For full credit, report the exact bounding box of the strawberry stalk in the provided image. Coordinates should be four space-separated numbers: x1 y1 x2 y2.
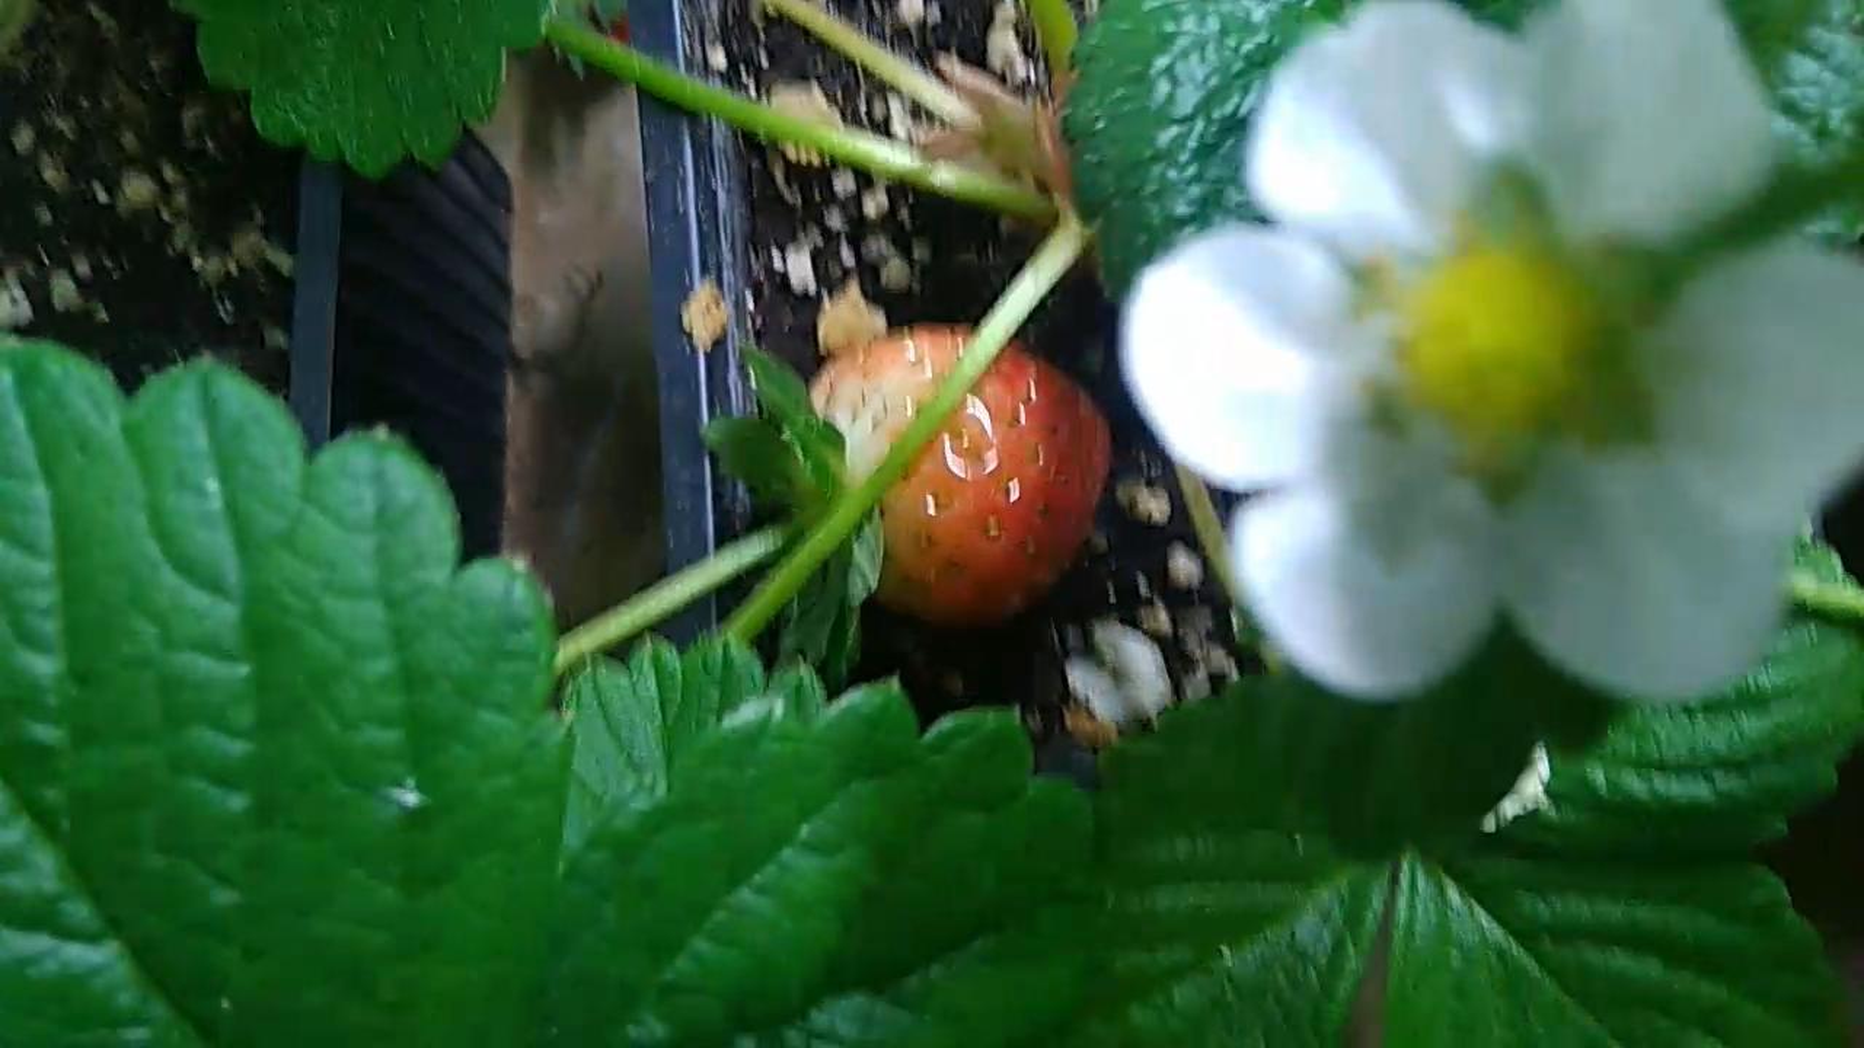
540 441 832 654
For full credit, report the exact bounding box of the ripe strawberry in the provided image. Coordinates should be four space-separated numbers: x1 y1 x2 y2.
786 324 1111 621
